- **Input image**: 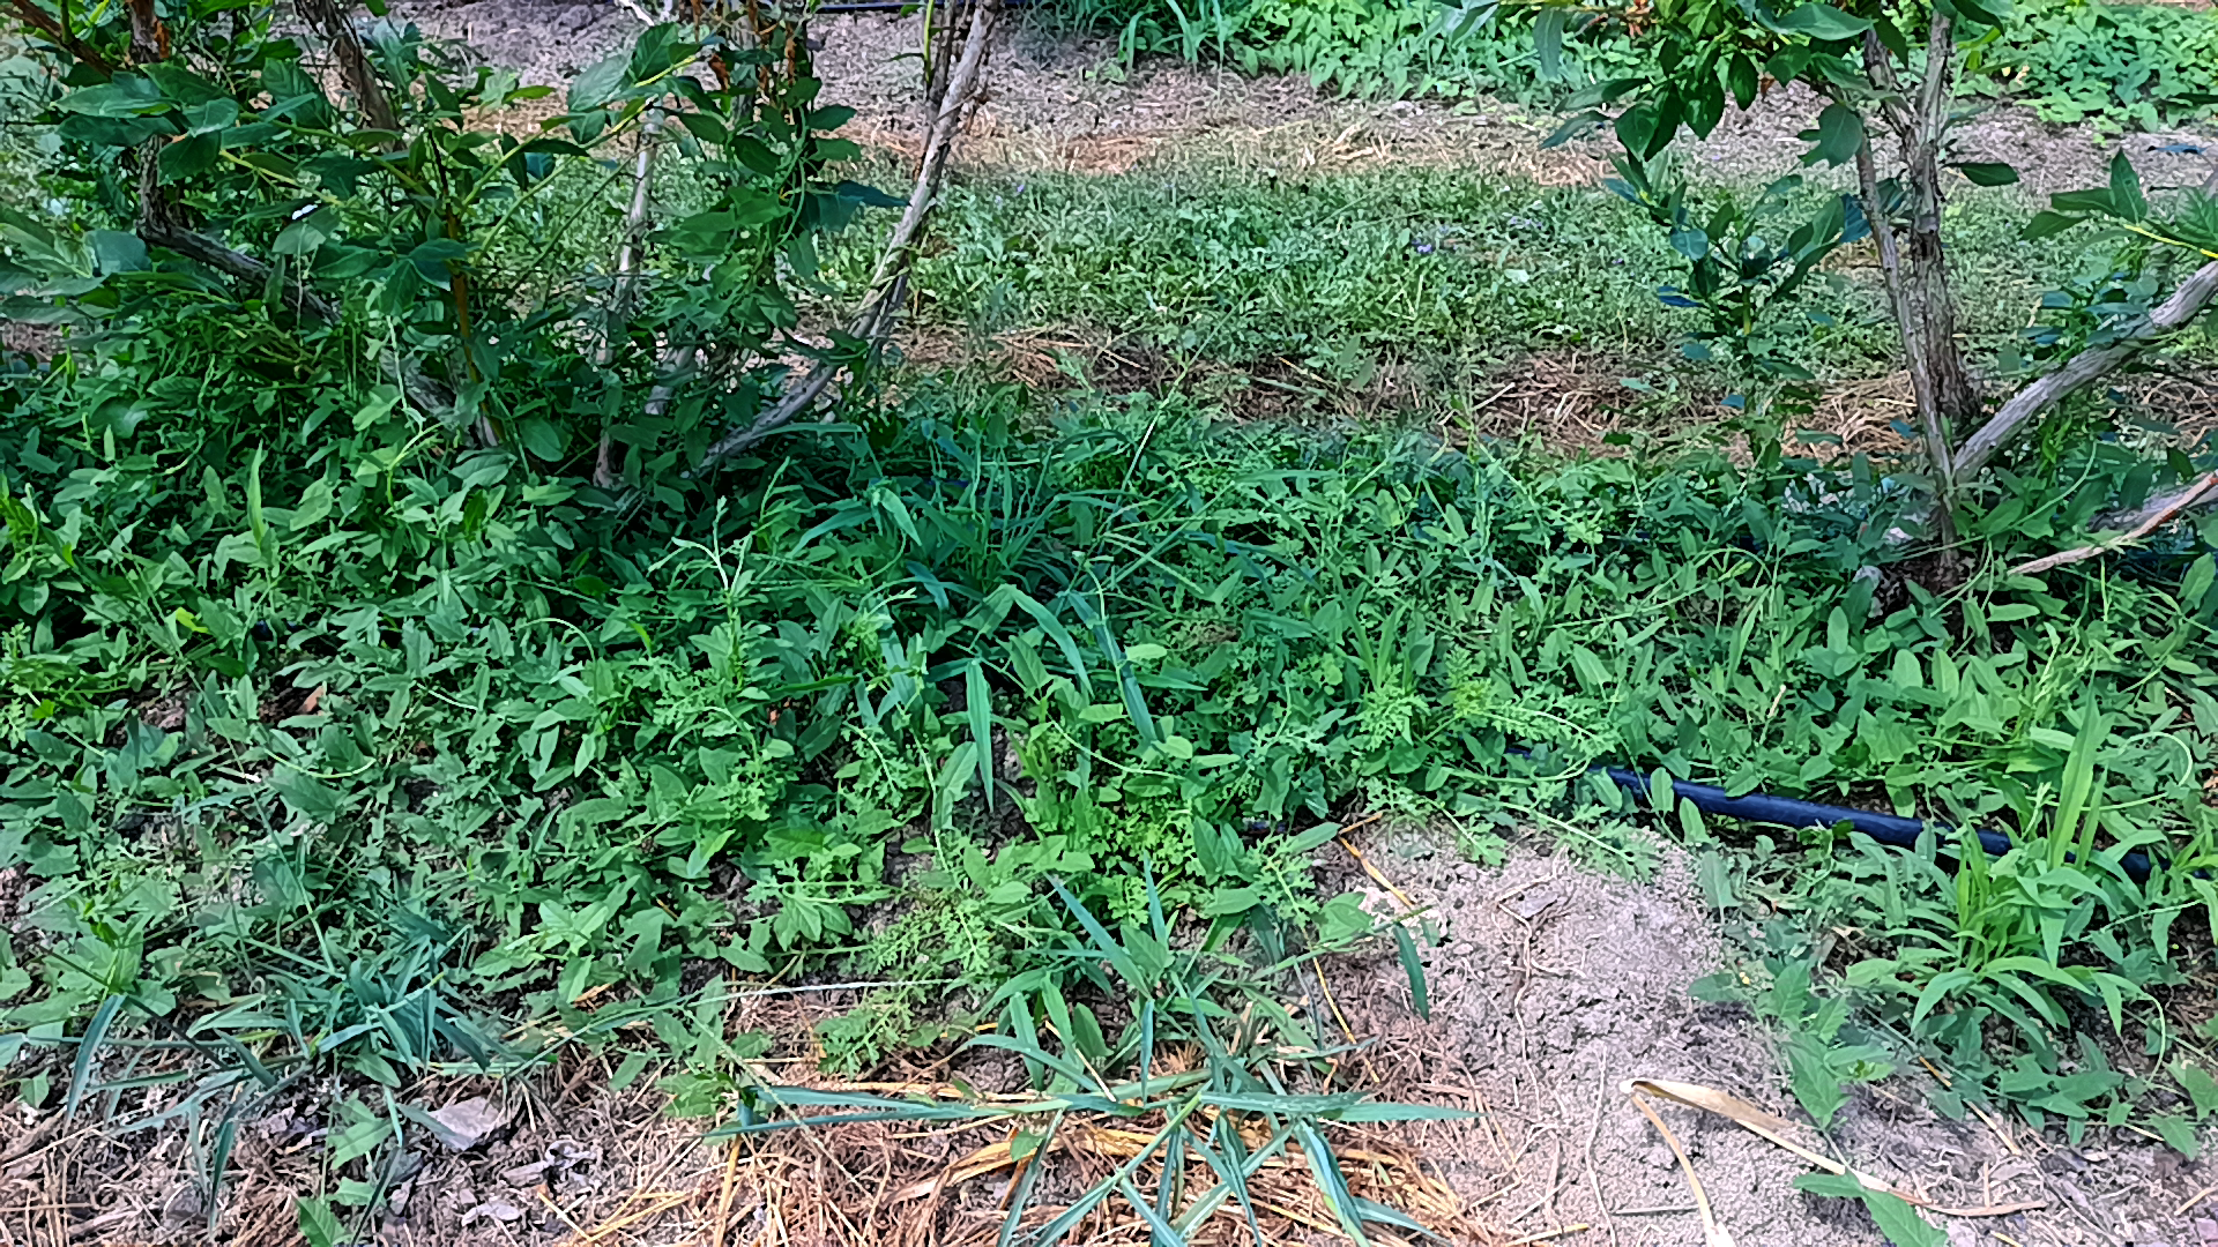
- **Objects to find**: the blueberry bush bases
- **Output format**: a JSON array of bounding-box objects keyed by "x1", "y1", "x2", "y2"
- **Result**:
[
  {"x1": 1780, "y1": 223, "x2": 2204, "y2": 718},
  {"x1": 295, "y1": 179, "x2": 982, "y2": 644}
]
